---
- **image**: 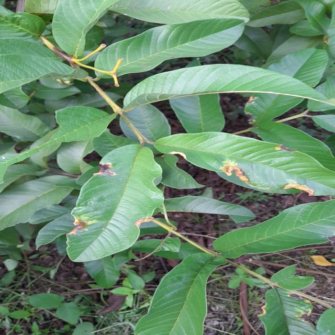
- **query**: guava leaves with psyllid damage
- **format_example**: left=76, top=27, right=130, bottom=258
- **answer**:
left=60, top=139, right=172, bottom=267
left=149, top=132, right=334, bottom=203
